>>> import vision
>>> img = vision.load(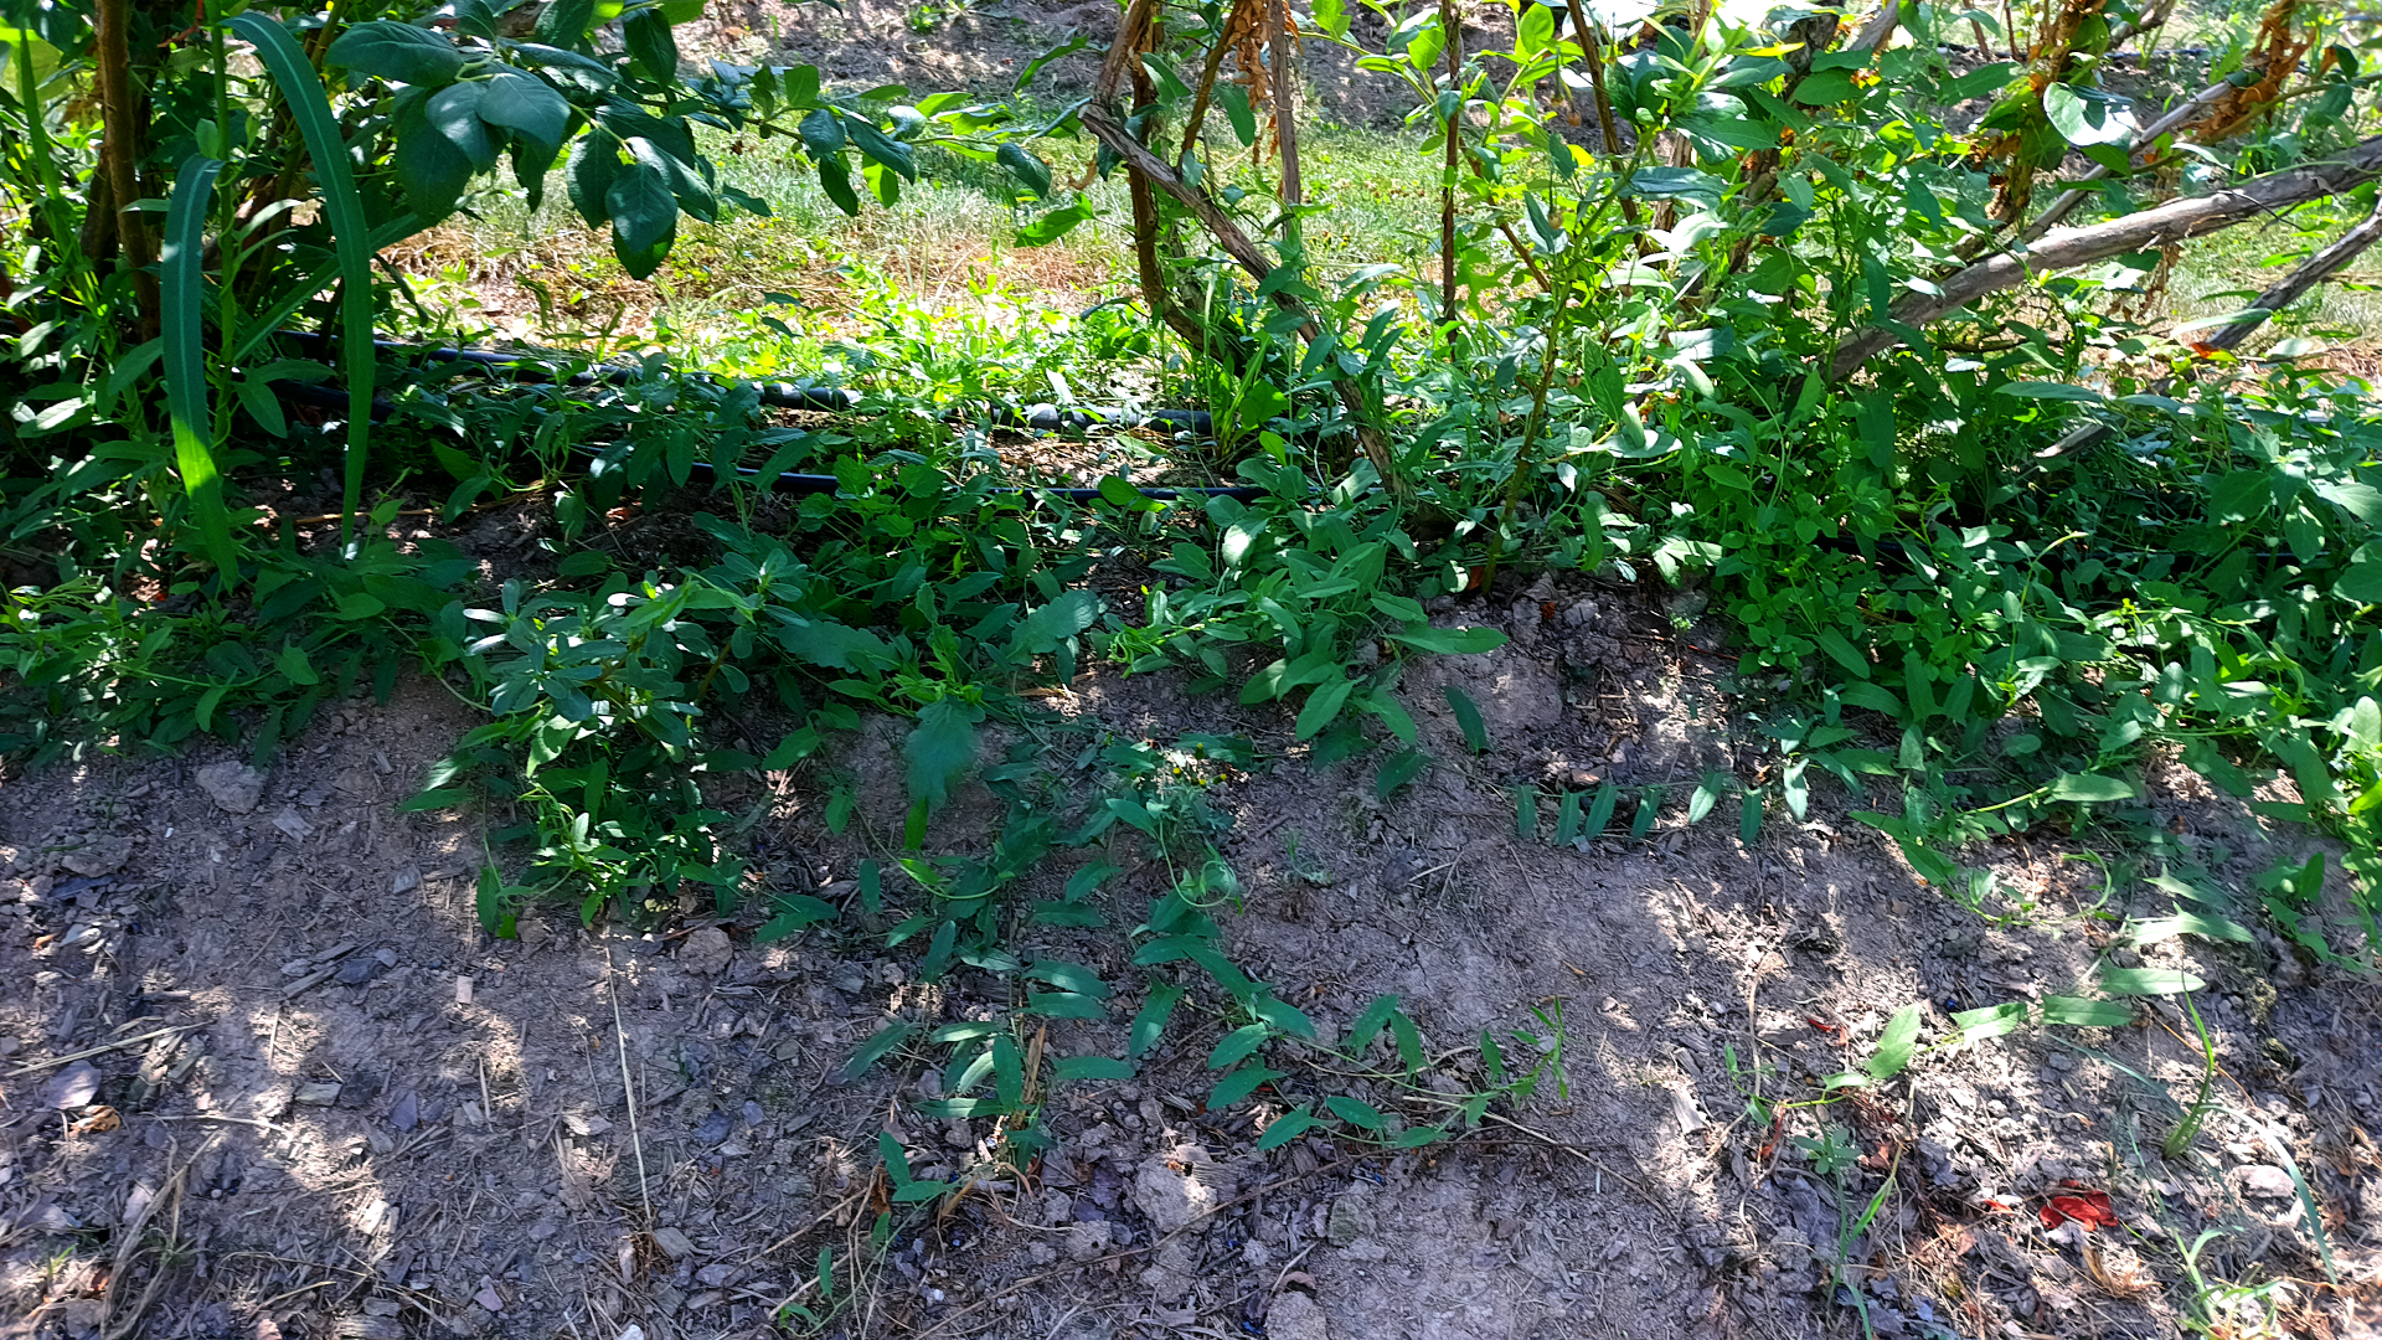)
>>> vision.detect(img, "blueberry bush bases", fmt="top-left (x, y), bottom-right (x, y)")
top-left (1120, 139), bottom-right (2081, 744)
top-left (0, 87), bottom-right (392, 697)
